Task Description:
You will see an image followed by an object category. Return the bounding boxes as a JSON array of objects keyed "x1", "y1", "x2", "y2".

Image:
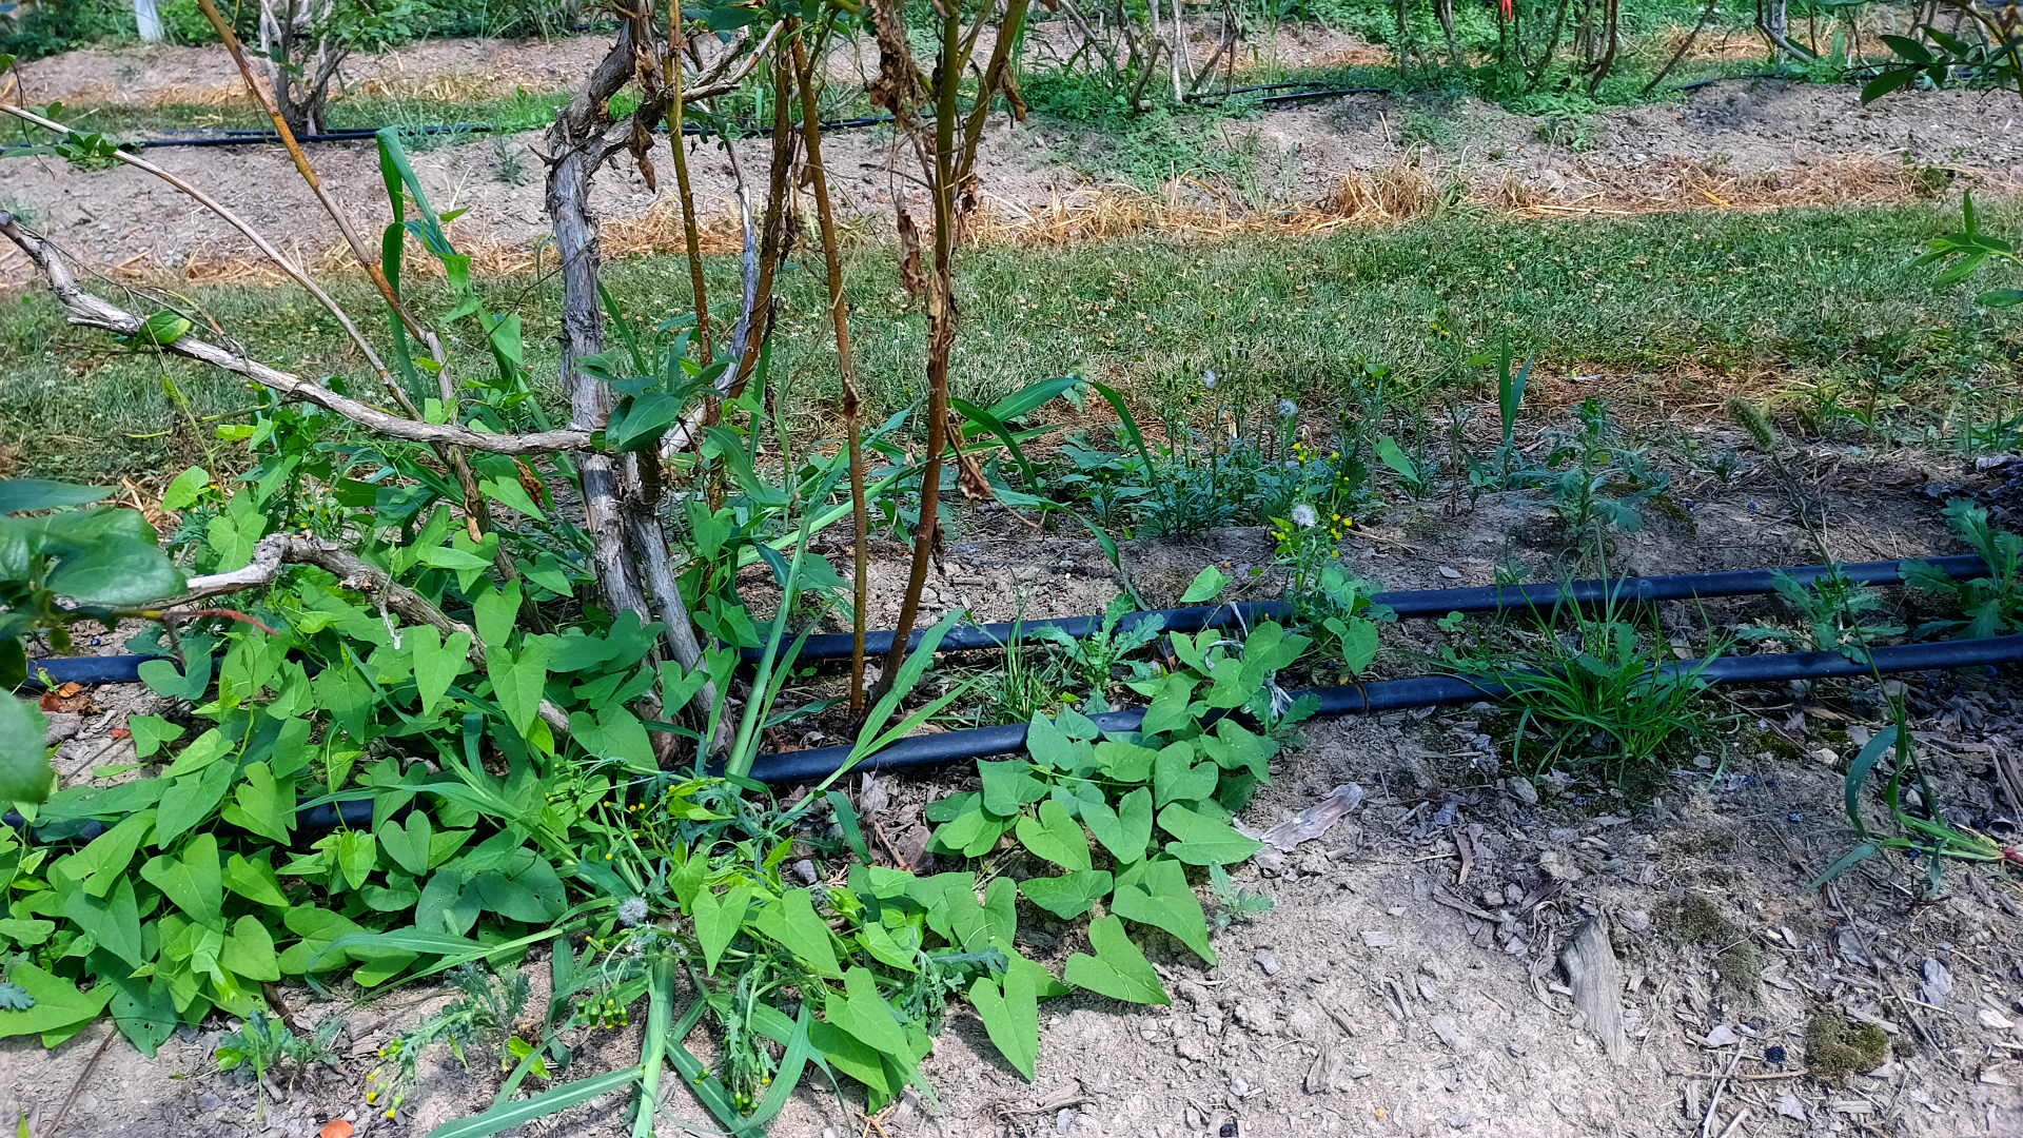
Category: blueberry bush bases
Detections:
[
  {"x1": 1068, "y1": 51, "x2": 1244, "y2": 148},
  {"x1": 222, "y1": 60, "x2": 374, "y2": 181},
  {"x1": 1762, "y1": 27, "x2": 1973, "y2": 101},
  {"x1": 322, "y1": 392, "x2": 999, "y2": 917},
  {"x1": 1368, "y1": 38, "x2": 1699, "y2": 128}
]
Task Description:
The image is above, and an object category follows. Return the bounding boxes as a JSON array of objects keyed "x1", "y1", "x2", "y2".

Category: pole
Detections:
[{"x1": 131, "y1": 0, "x2": 164, "y2": 59}]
